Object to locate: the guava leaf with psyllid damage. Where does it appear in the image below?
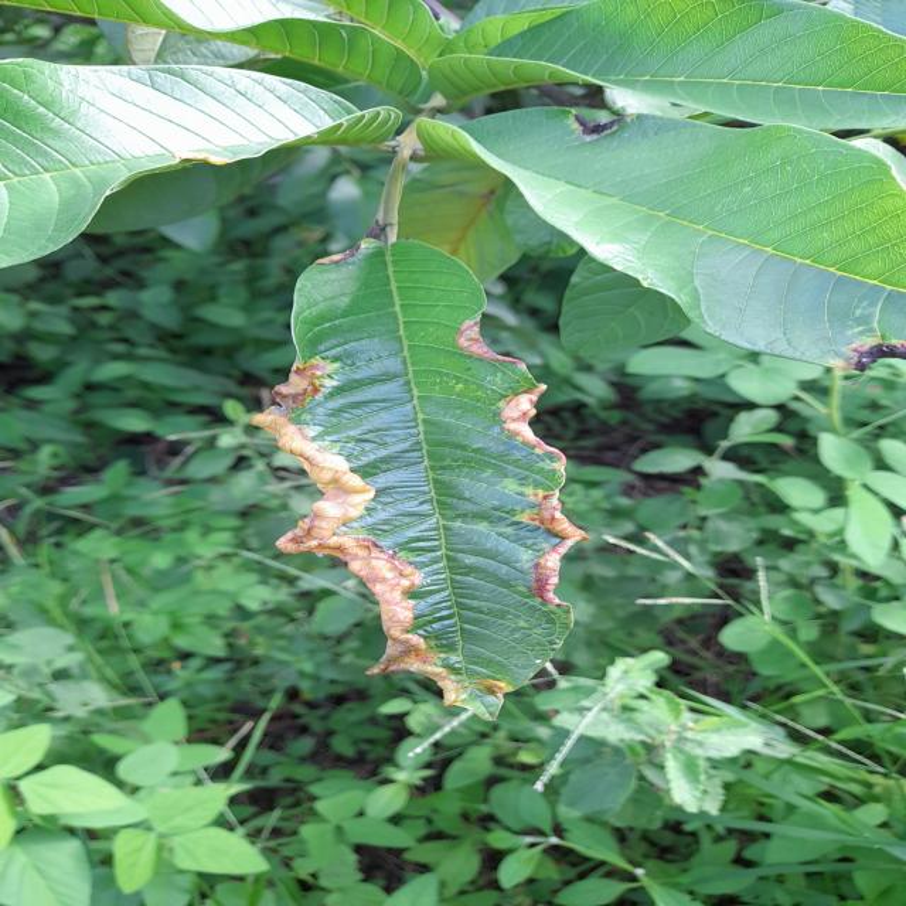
[239,226,603,733]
